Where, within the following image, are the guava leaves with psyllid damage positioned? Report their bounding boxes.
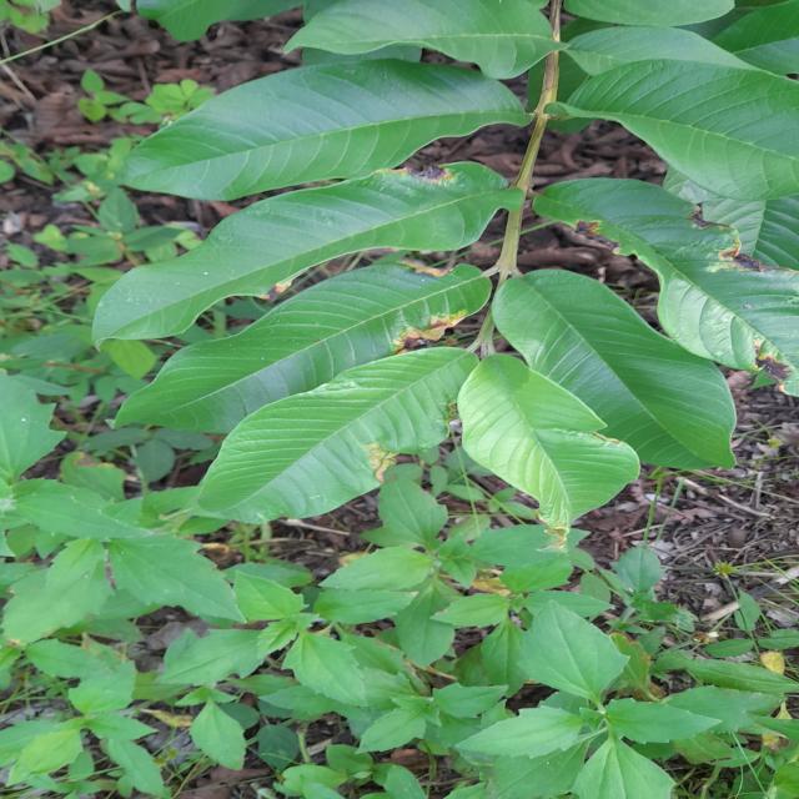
[179,345,480,526]
[69,155,534,354]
